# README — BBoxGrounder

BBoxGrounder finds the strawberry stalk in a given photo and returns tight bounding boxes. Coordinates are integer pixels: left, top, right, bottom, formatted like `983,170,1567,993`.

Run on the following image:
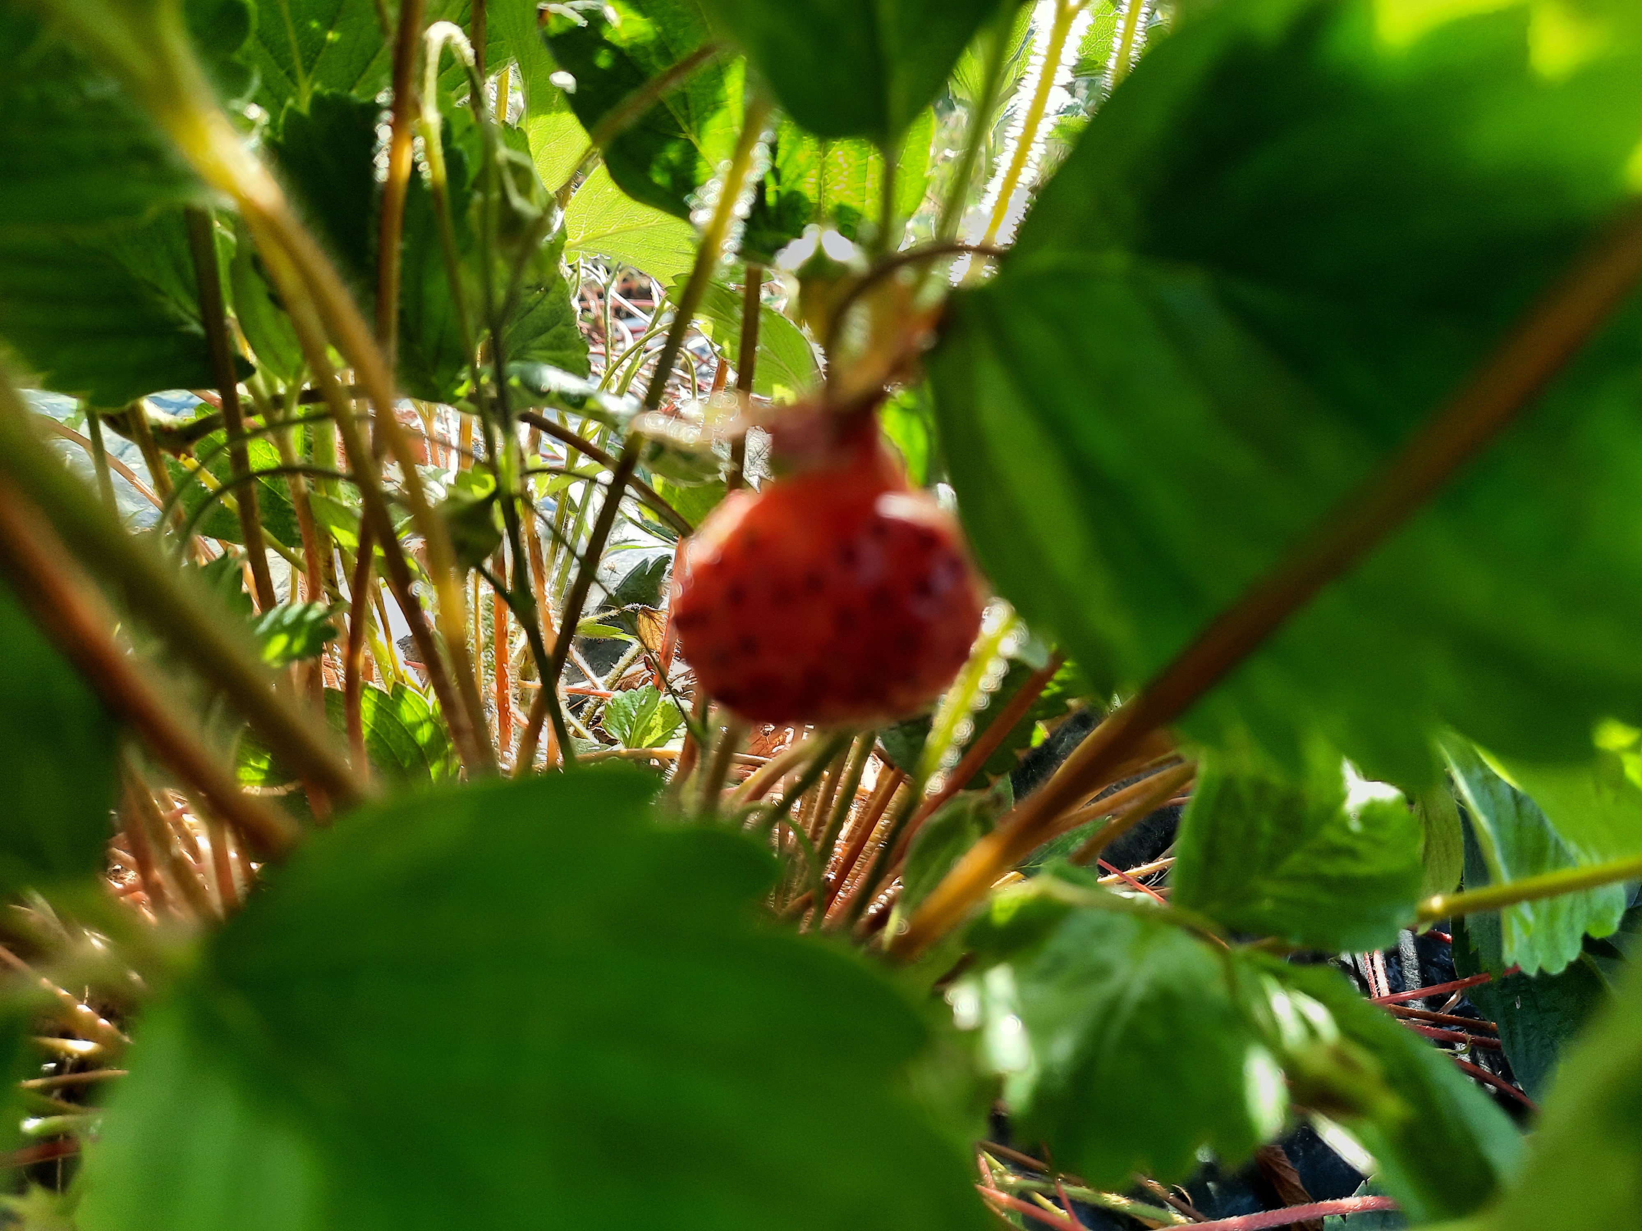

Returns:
797,231,975,537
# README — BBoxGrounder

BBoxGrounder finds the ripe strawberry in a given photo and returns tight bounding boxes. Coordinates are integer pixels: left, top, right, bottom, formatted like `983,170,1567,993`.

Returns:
689,457,959,708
